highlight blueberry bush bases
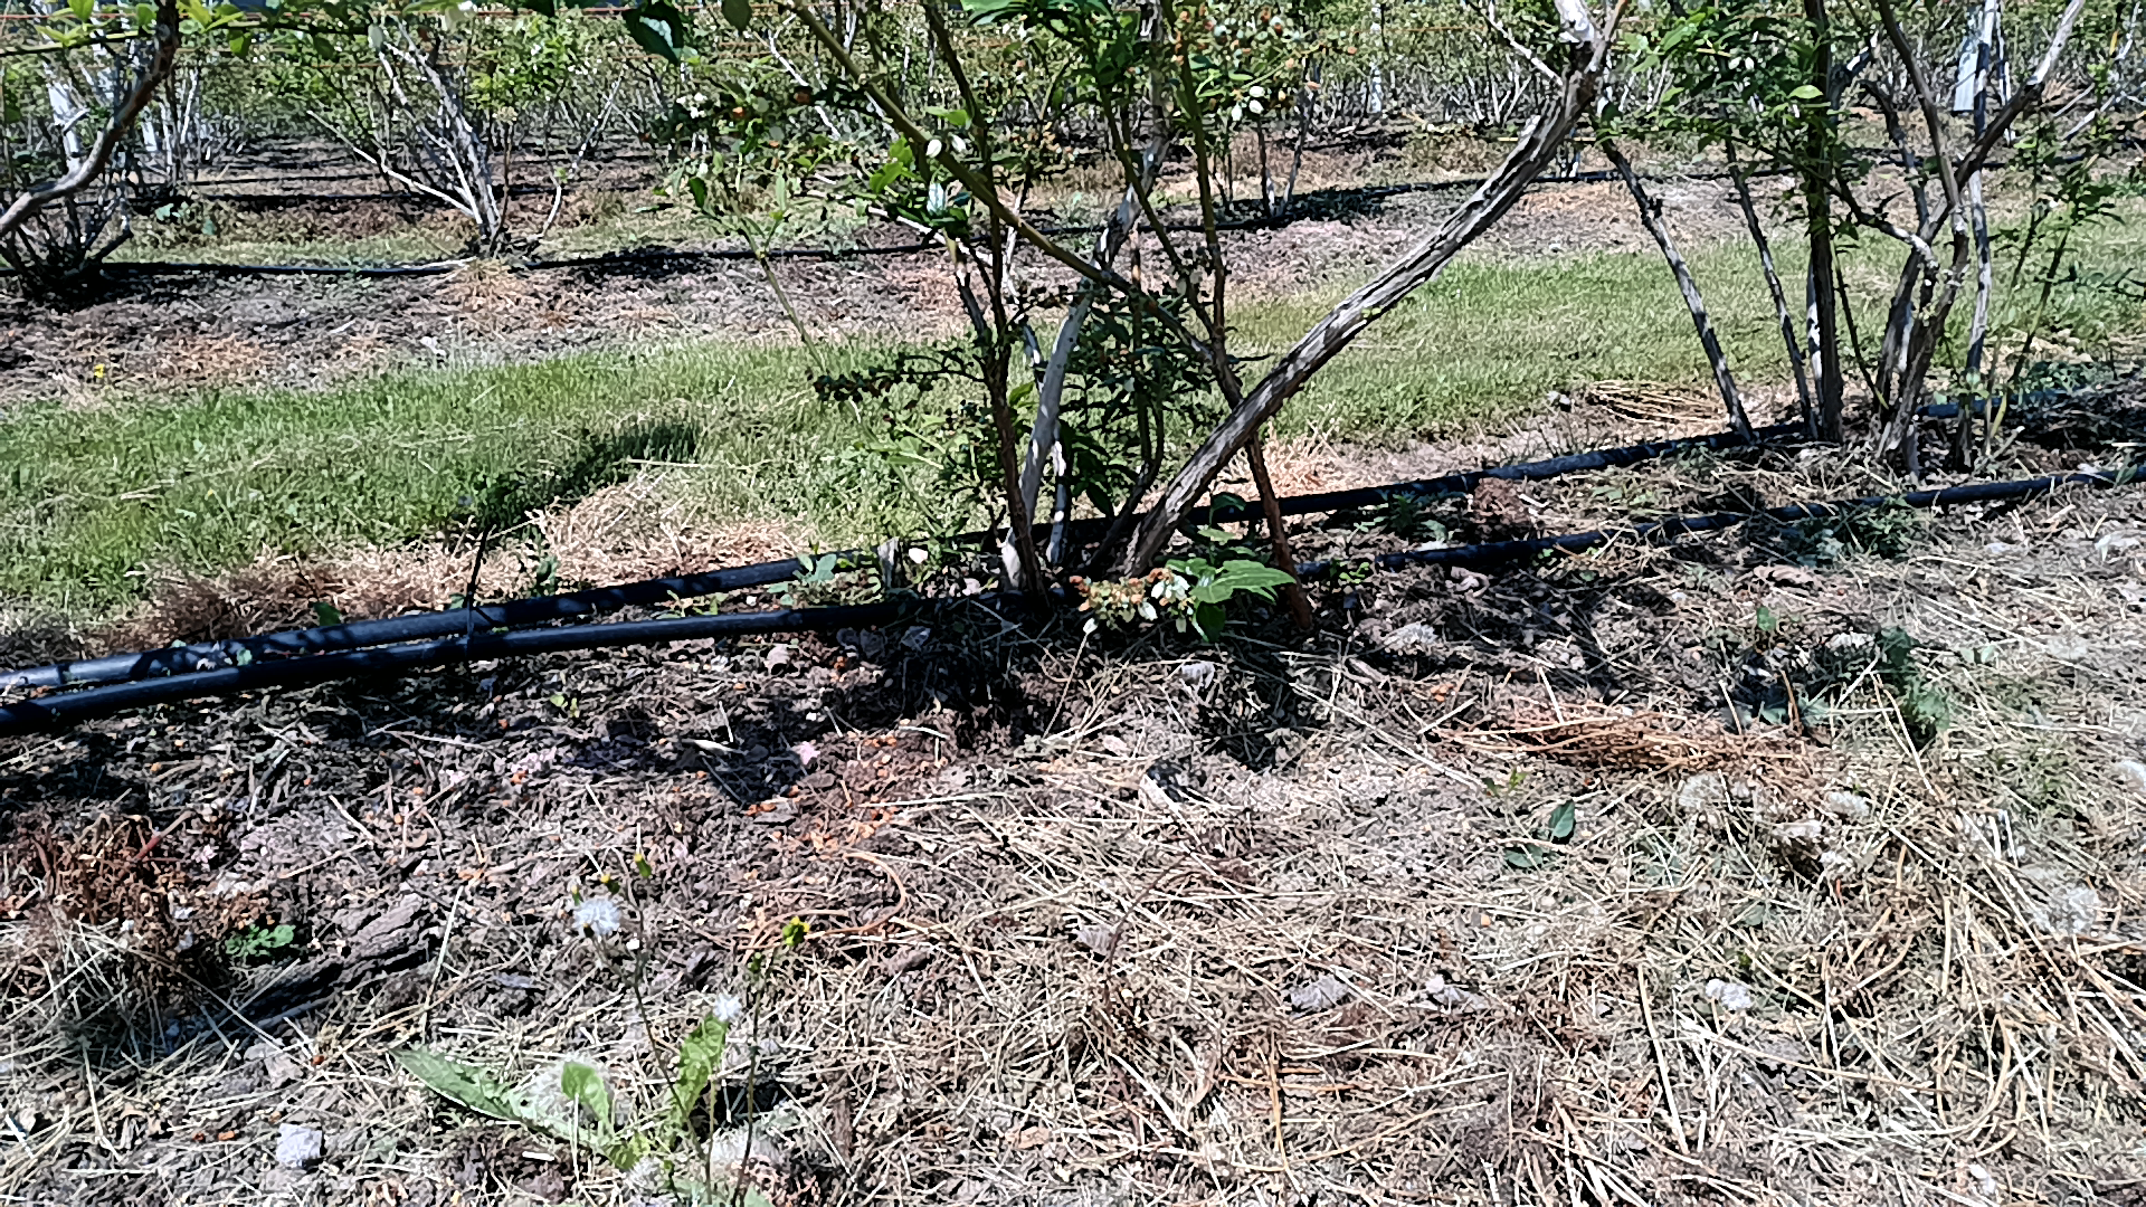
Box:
[1186,162,1324,254]
[1441,85,1531,154]
[4,158,158,332]
[422,170,566,282]
[895,374,1317,691]
[1658,286,2071,530]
